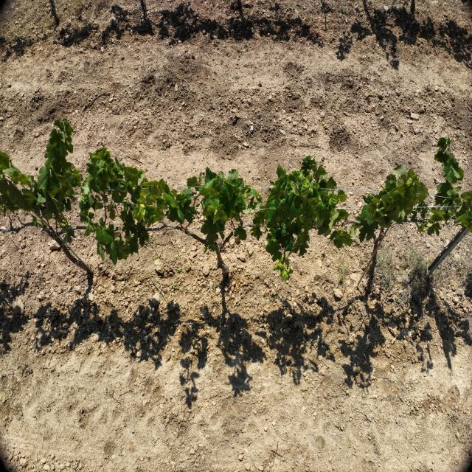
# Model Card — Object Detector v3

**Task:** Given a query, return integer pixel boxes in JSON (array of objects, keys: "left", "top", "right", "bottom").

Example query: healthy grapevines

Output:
[
  {"left": 292, "top": 156, "right": 472, "bottom": 292},
  {"left": 102, "top": 149, "right": 305, "bottom": 290},
  {"left": 0, "top": 114, "right": 121, "bottom": 298}
]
